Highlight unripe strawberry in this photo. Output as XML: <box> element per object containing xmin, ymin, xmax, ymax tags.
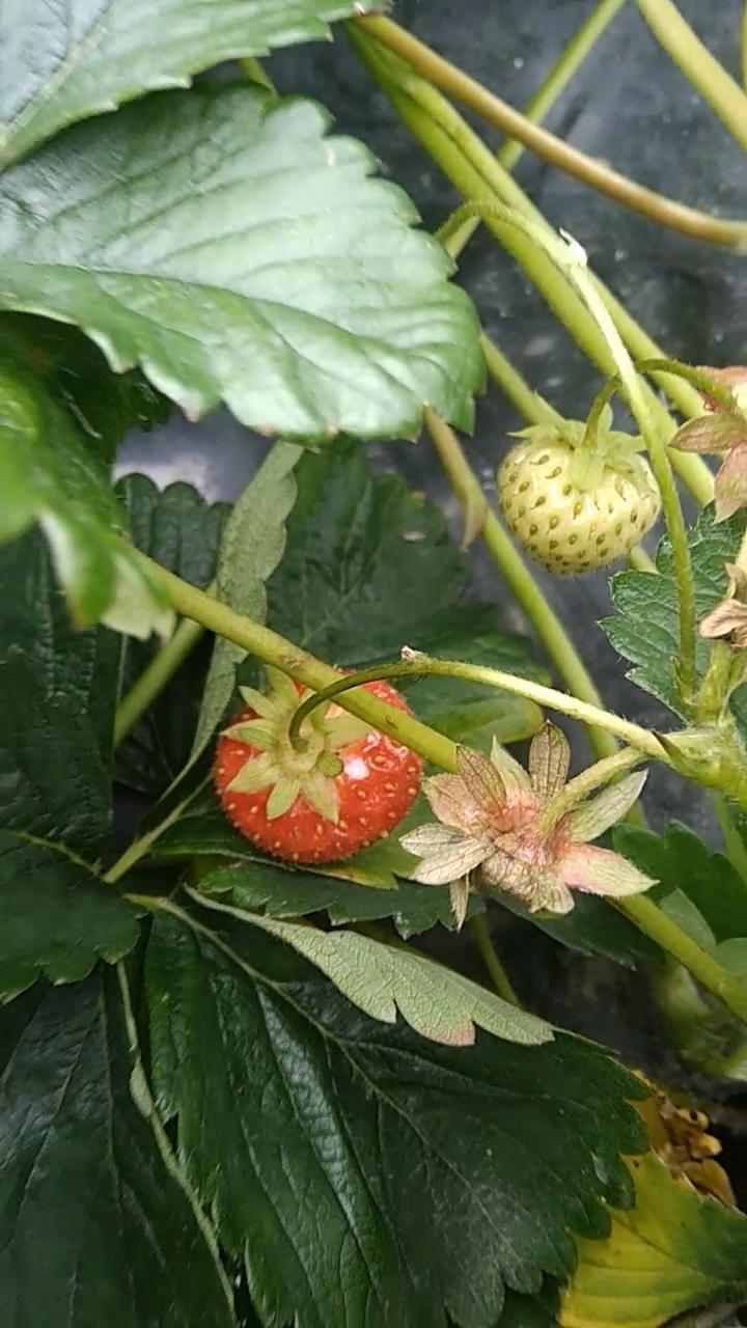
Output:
<box><xmin>487</xmin><ymin>412</ymin><xmax>667</xmax><ymax>584</ymax></box>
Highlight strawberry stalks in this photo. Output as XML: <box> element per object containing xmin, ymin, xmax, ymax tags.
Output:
<box><xmin>571</xmin><ymin>332</ymin><xmax>643</xmax><ymax>458</ymax></box>
<box><xmin>258</xmin><ymin>642</ymin><xmax>424</xmax><ymax>785</ymax></box>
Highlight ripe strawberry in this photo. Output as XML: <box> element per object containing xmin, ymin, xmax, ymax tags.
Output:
<box><xmin>222</xmin><ymin>669</ymin><xmax>423</xmax><ymax>869</ymax></box>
